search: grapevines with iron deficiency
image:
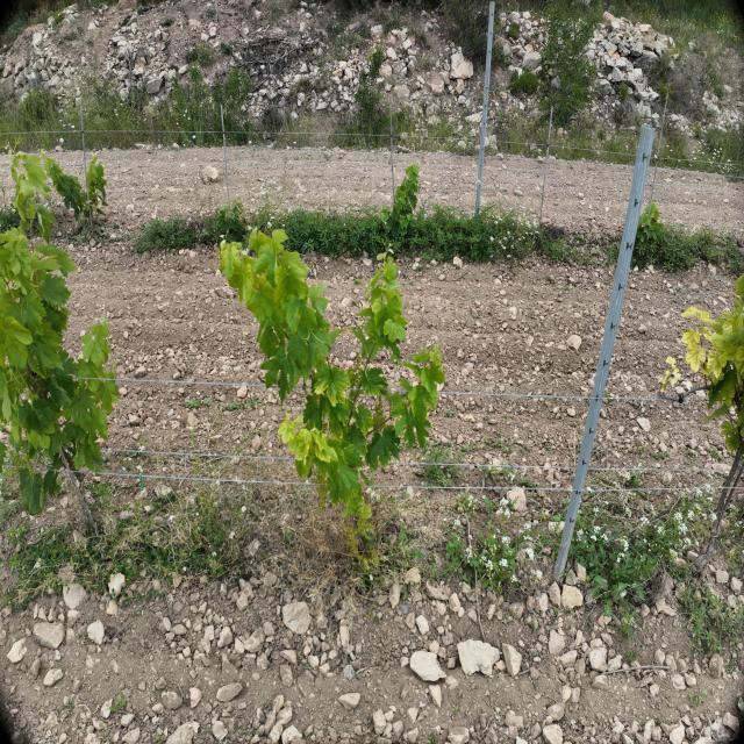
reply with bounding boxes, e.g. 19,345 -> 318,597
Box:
213,219 -> 452,579
657,270 -> 744,584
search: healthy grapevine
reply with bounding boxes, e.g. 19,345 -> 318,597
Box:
0,145 -> 135,541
